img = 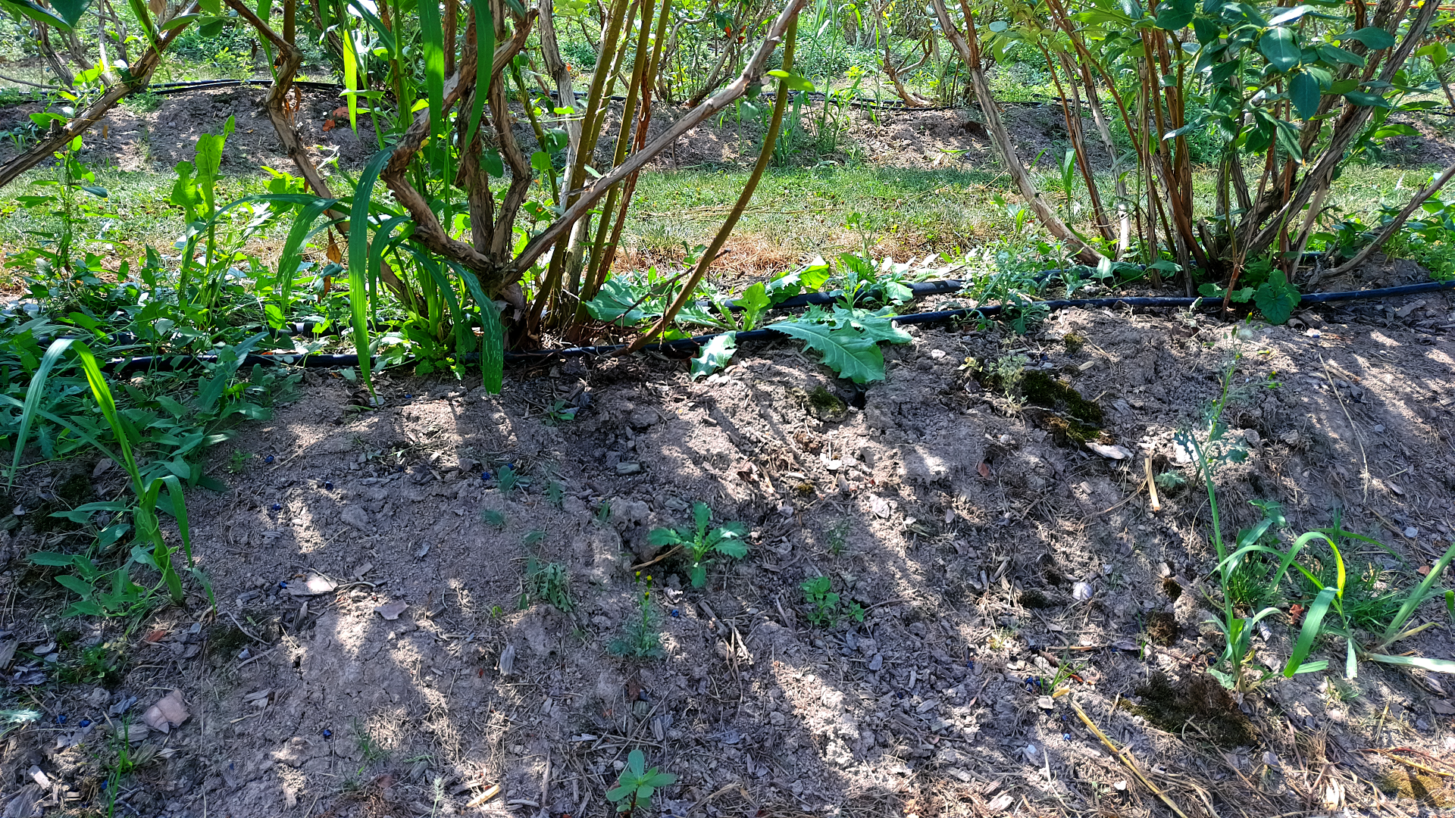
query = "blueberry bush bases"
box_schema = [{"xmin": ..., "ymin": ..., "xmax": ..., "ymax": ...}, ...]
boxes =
[
  {"xmin": 1032, "ymin": 163, "xmax": 1396, "ymax": 363},
  {"xmin": 319, "ymin": 177, "xmax": 753, "ymax": 424},
  {"xmin": 903, "ymin": 74, "xmax": 985, "ymax": 118}
]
